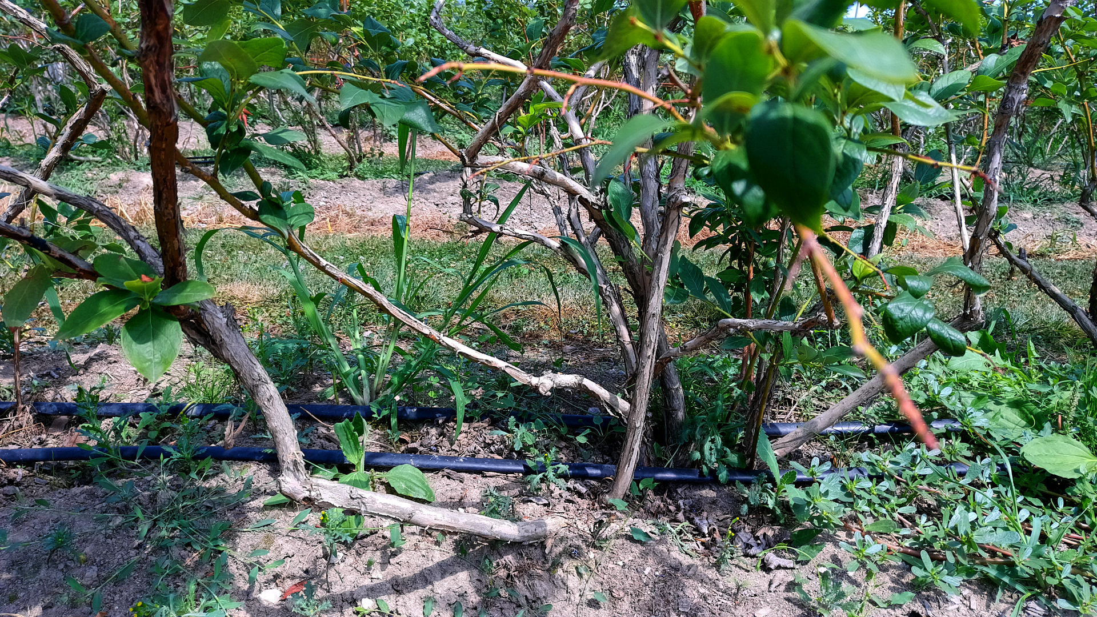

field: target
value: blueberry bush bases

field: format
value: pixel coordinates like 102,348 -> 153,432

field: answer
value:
306,135 -> 398,192
515,330 -> 882,550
